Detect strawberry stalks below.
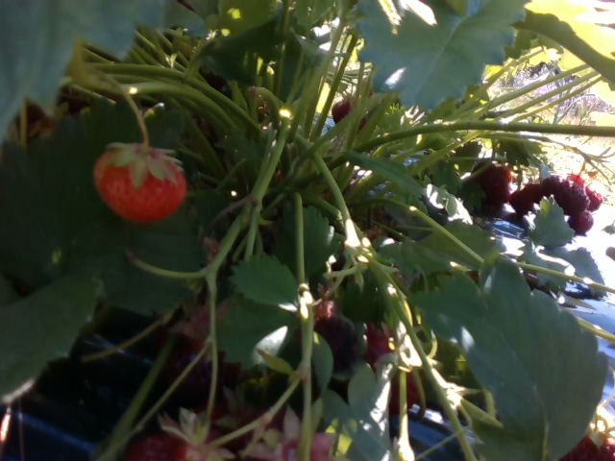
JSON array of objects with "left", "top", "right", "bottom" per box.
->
[
  {"left": 192, "top": 359, "right": 228, "bottom": 450},
  {"left": 578, "top": 155, "right": 592, "bottom": 185},
  {"left": 128, "top": 84, "right": 158, "bottom": 178},
  {"left": 292, "top": 387, "right": 316, "bottom": 461},
  {"left": 347, "top": 76, "right": 357, "bottom": 111}
]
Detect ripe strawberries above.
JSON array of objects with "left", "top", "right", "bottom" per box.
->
[
  {"left": 132, "top": 421, "right": 224, "bottom": 461},
  {"left": 467, "top": 162, "right": 518, "bottom": 206},
  {"left": 97, "top": 139, "right": 183, "bottom": 218},
  {"left": 559, "top": 182, "right": 596, "bottom": 215},
  {"left": 330, "top": 91, "right": 376, "bottom": 135},
  {"left": 563, "top": 419, "right": 615, "bottom": 461}
]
